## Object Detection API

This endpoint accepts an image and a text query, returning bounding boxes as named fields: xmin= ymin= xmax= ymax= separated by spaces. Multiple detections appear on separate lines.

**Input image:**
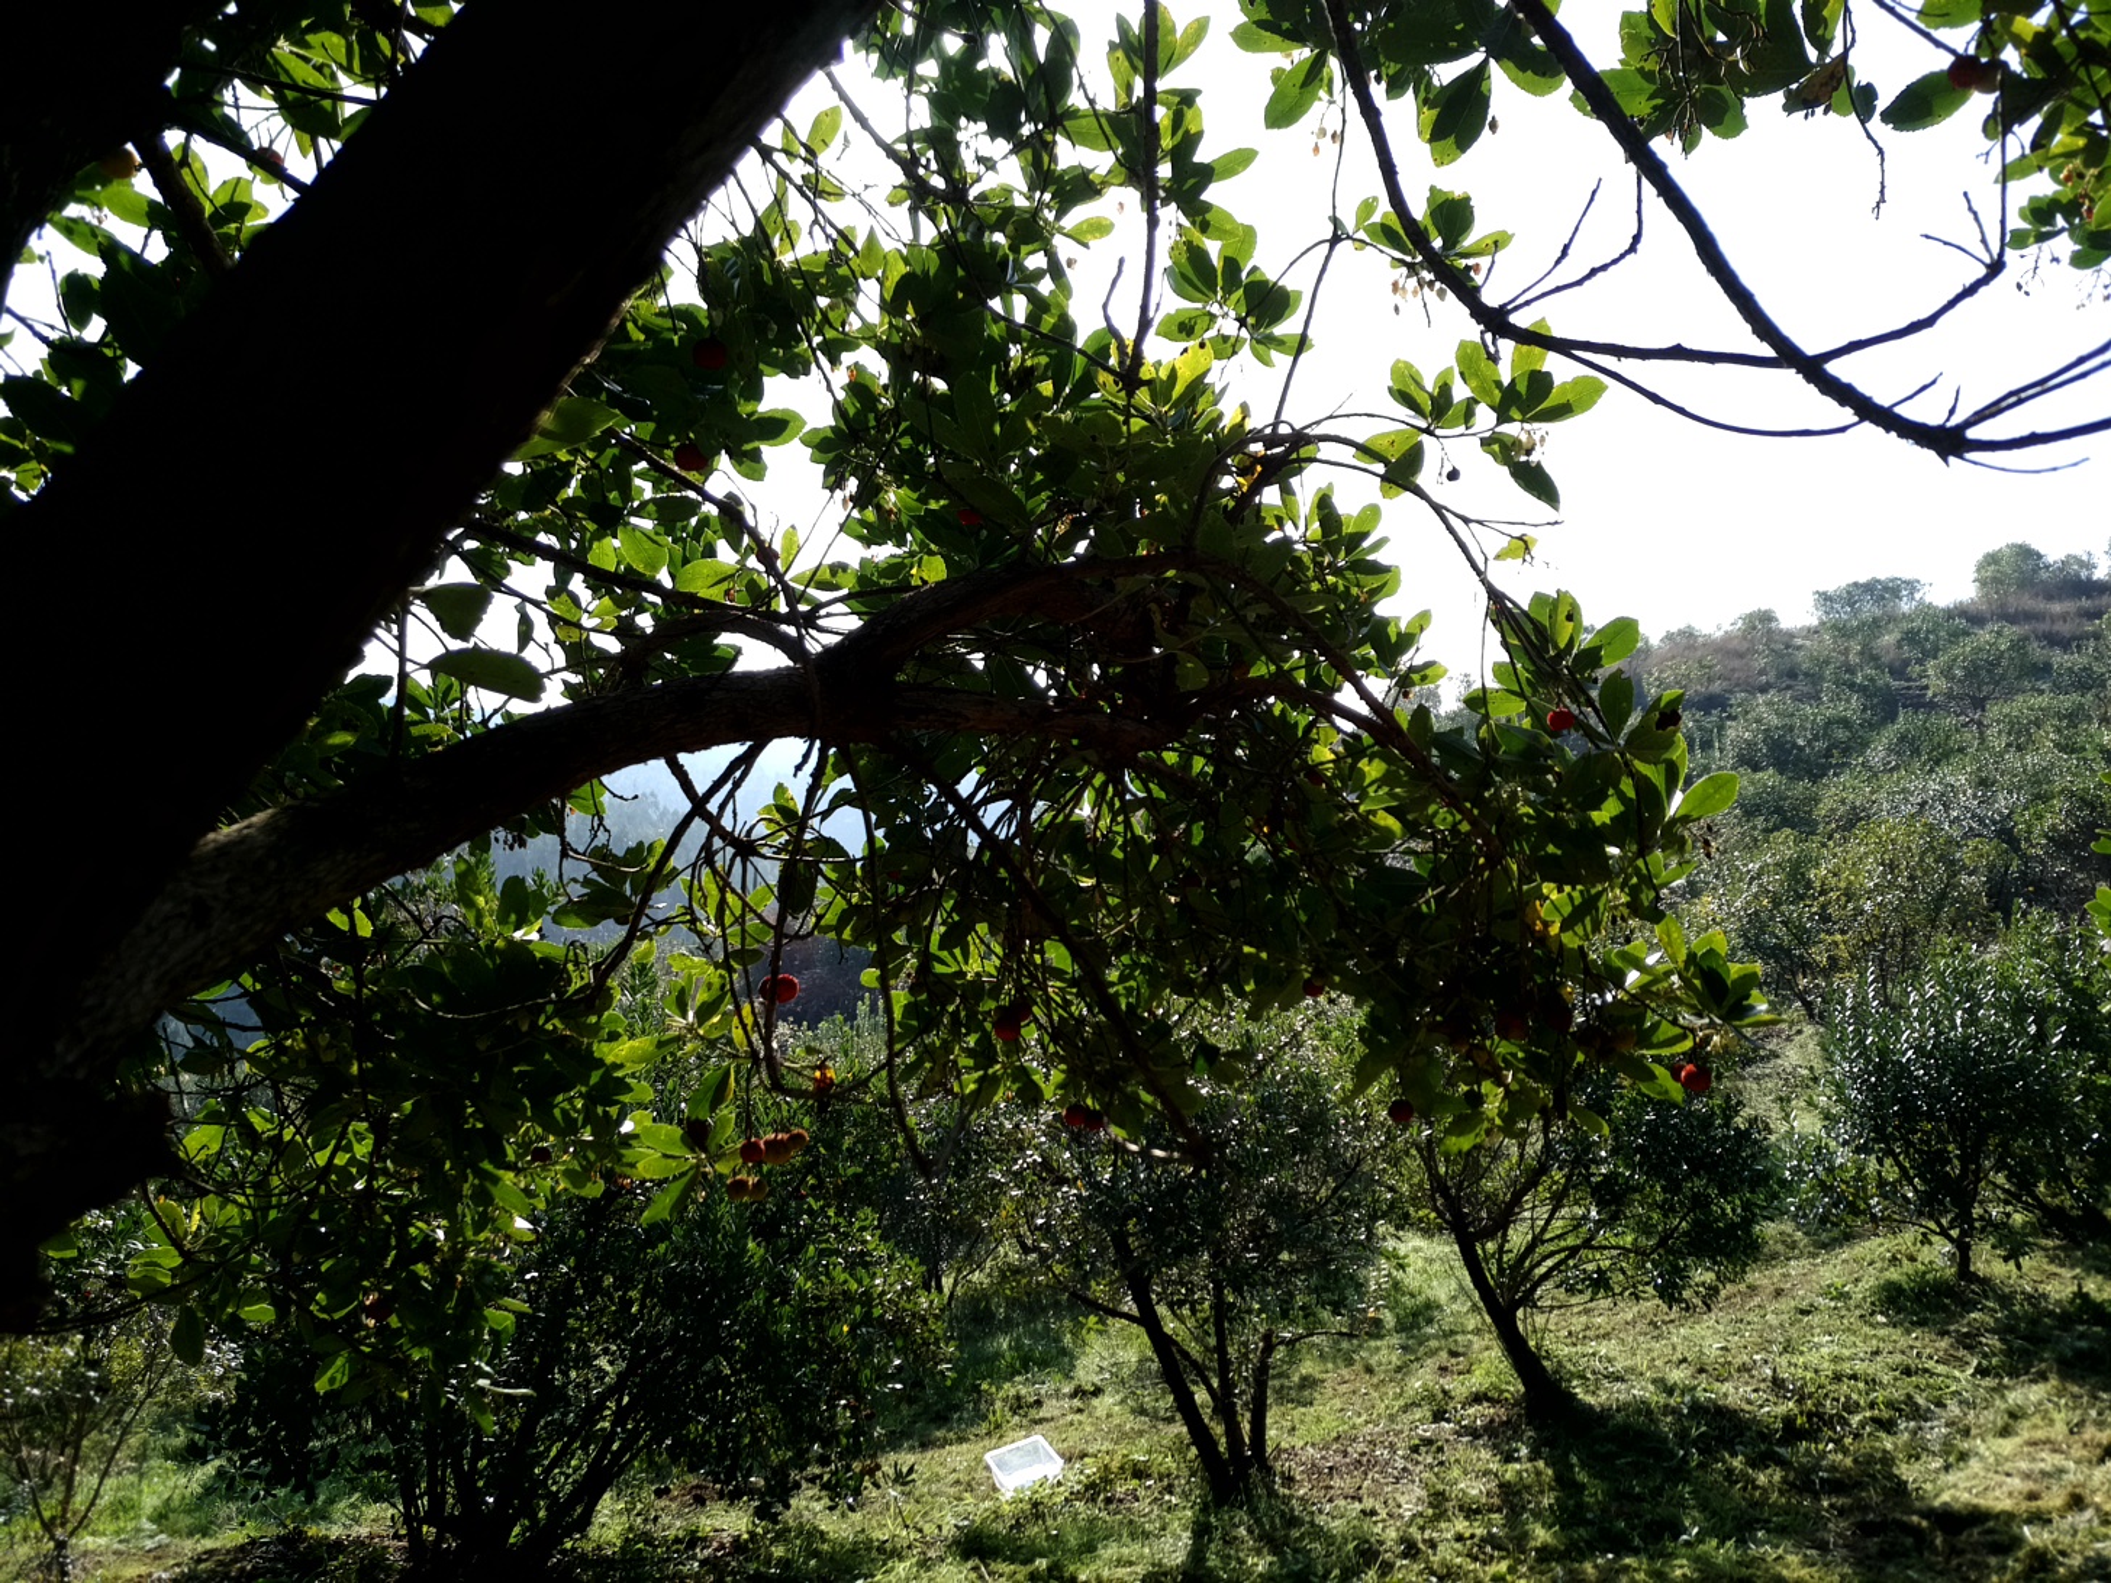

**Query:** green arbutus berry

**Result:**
xmin=1976 ymin=58 xmax=2009 ymax=94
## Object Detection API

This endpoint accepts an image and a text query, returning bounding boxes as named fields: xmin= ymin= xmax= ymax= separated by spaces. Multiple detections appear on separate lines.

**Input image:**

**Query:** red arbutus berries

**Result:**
xmin=1302 ymin=976 xmax=1325 ymax=997
xmin=1681 ymin=1062 xmax=1713 ymax=1092
xmin=954 ymin=508 xmax=982 ymax=525
xmin=994 ymin=1013 xmax=1022 ymax=1040
xmin=1950 ymin=52 xmax=1983 ymax=88
xmin=1388 ymin=1099 xmax=1415 ymax=1124
xmin=1547 ymin=708 xmax=1577 ymax=730
xmin=740 ymin=1139 xmax=766 ymax=1164
xmin=1065 ymin=1103 xmax=1088 ymax=1126
xmin=767 ymin=972 xmax=799 ymax=1003
xmin=674 ymin=443 xmax=708 ymax=470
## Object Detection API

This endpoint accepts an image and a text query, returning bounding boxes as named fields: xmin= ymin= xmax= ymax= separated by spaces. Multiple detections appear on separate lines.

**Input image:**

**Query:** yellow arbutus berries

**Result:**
xmin=728 ymin=1176 xmax=752 ymax=1200
xmin=748 ymin=1176 xmax=768 ymax=1199
xmin=762 ymin=1131 xmax=794 ymax=1165
xmin=809 ymin=1065 xmax=837 ymax=1091
xmin=787 ymin=1129 xmax=811 ymax=1149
